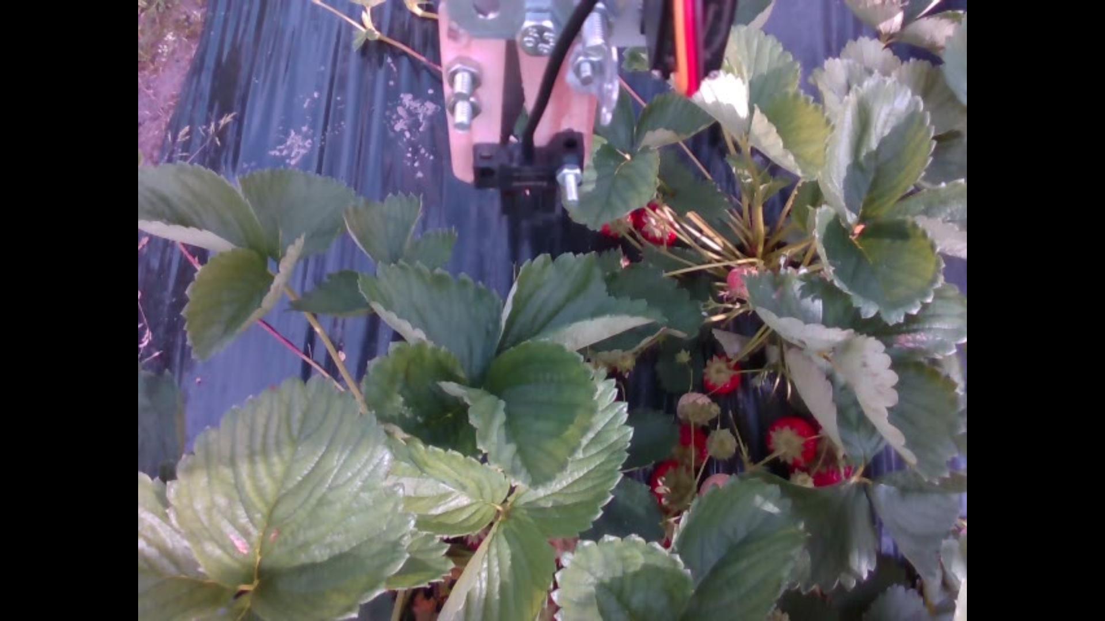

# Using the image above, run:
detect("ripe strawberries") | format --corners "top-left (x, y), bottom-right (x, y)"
top-left (590, 196), bottom-right (637, 239)
top-left (697, 353), bottom-right (749, 400)
top-left (809, 442), bottom-right (857, 491)
top-left (771, 416), bottom-right (826, 468)
top-left (646, 453), bottom-right (698, 510)
top-left (631, 202), bottom-right (677, 248)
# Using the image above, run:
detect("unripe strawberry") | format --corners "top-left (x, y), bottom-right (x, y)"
top-left (677, 389), bottom-right (716, 426)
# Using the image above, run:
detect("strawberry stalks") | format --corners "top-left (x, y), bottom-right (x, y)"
top-left (704, 437), bottom-right (716, 471)
top-left (718, 367), bottom-right (777, 381)
top-left (674, 476), bottom-right (699, 507)
top-left (727, 265), bottom-right (773, 303)
top-left (687, 406), bottom-right (699, 442)
top-left (608, 214), bottom-right (638, 251)
top-left (746, 442), bottom-right (790, 474)
top-left (732, 256), bottom-right (771, 277)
